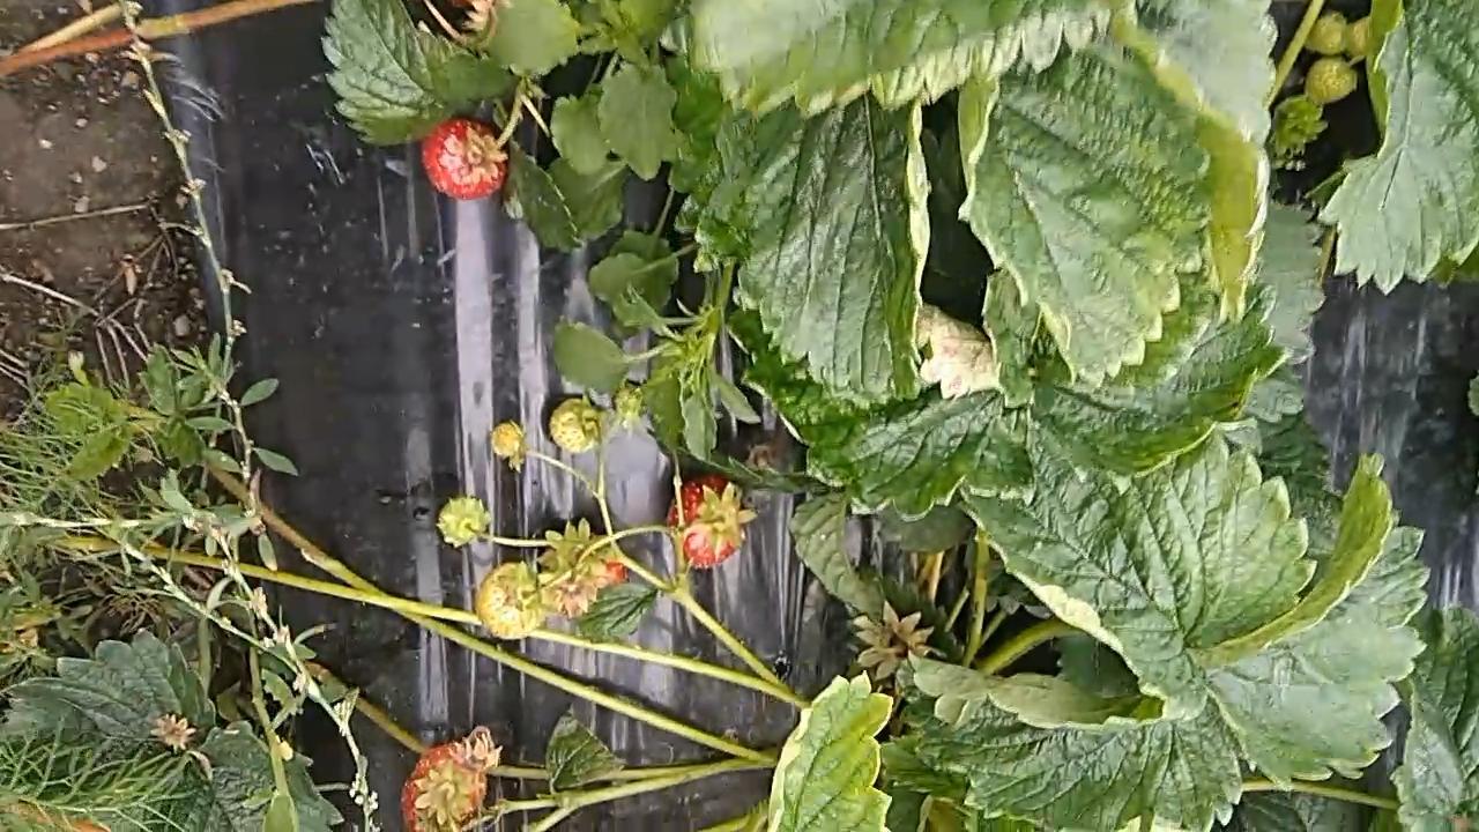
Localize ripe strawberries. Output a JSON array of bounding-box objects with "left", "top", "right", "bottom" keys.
[
  {"left": 389, "top": 740, "right": 504, "bottom": 832},
  {"left": 663, "top": 476, "right": 751, "bottom": 580},
  {"left": 410, "top": 118, "right": 515, "bottom": 206}
]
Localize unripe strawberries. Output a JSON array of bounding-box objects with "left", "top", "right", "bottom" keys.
[
  {"left": 433, "top": 491, "right": 494, "bottom": 554},
  {"left": 1307, "top": 57, "right": 1357, "bottom": 109},
  {"left": 540, "top": 391, "right": 606, "bottom": 450},
  {"left": 1300, "top": 9, "right": 1347, "bottom": 51},
  {"left": 466, "top": 560, "right": 550, "bottom": 642},
  {"left": 486, "top": 421, "right": 535, "bottom": 460}
]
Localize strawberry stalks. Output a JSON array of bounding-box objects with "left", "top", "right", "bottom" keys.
[
  {"left": 462, "top": 94, "right": 533, "bottom": 162},
  {"left": 512, "top": 578, "right": 576, "bottom": 601},
  {"left": 469, "top": 518, "right": 531, "bottom": 553},
  {"left": 515, "top": 444, "right": 570, "bottom": 477},
  {"left": 588, "top": 406, "right": 649, "bottom": 431},
  {"left": 636, "top": 508, "right": 729, "bottom": 552},
  {"left": 442, "top": 789, "right": 477, "bottom": 831}
]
